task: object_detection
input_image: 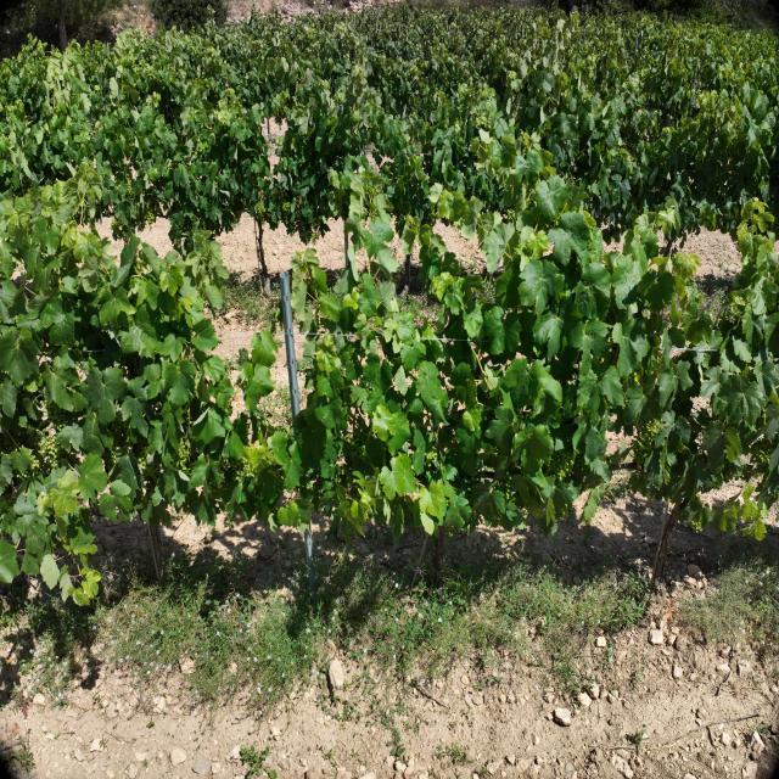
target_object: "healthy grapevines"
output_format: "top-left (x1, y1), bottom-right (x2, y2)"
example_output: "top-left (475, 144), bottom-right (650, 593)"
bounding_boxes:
top-left (0, 189), bottom-right (239, 646)
top-left (240, 208), bottom-right (593, 627)
top-left (589, 208), bottom-right (779, 610)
